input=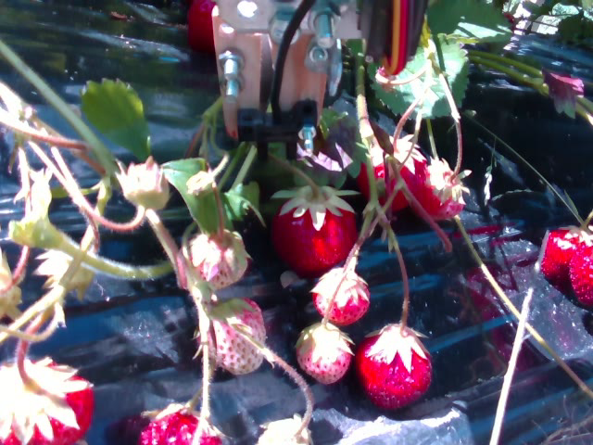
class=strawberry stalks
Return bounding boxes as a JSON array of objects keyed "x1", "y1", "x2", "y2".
[
  {"x1": 389, "y1": 253, "x2": 415, "y2": 349},
  {"x1": 12, "y1": 319, "x2": 56, "y2": 405},
  {"x1": 168, "y1": 382, "x2": 204, "y2": 430},
  {"x1": 328, "y1": 232, "x2": 369, "y2": 302},
  {"x1": 315, "y1": 275, "x2": 346, "y2": 346},
  {"x1": 386, "y1": 103, "x2": 419, "y2": 169},
  {"x1": 264, "y1": 157, "x2": 324, "y2": 217},
  {"x1": 204, "y1": 179, "x2": 225, "y2": 252},
  {"x1": 440, "y1": 120, "x2": 463, "y2": 192}
]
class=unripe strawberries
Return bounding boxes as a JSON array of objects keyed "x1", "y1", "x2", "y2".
[
  {"x1": 310, "y1": 279, "x2": 372, "y2": 327},
  {"x1": 185, "y1": 226, "x2": 259, "y2": 286},
  {"x1": 295, "y1": 328, "x2": 355, "y2": 378},
  {"x1": 201, "y1": 300, "x2": 268, "y2": 369}
]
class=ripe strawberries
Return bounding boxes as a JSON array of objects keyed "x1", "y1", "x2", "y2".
[
  {"x1": 279, "y1": 198, "x2": 353, "y2": 267},
  {"x1": 548, "y1": 228, "x2": 579, "y2": 281},
  {"x1": 363, "y1": 331, "x2": 428, "y2": 406},
  {"x1": 409, "y1": 166, "x2": 463, "y2": 219},
  {"x1": 574, "y1": 242, "x2": 591, "y2": 299},
  {"x1": 121, "y1": 410, "x2": 214, "y2": 445},
  {"x1": 0, "y1": 363, "x2": 100, "y2": 445},
  {"x1": 359, "y1": 155, "x2": 412, "y2": 208}
]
